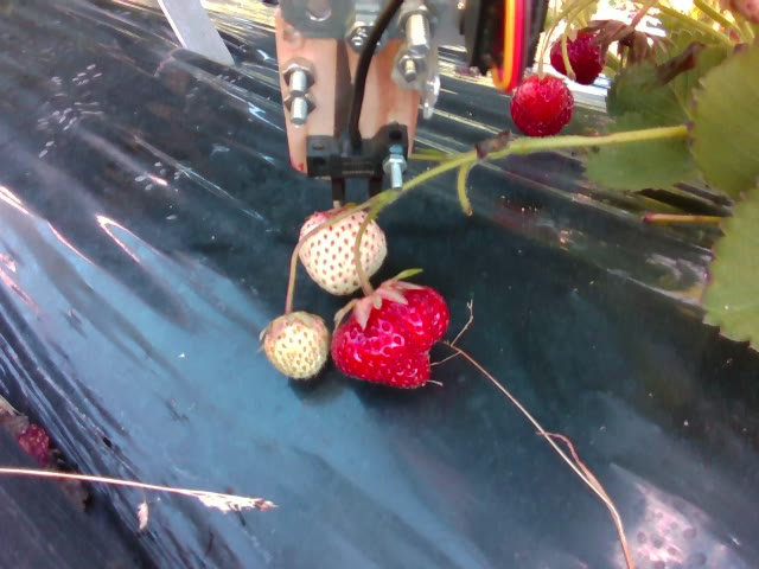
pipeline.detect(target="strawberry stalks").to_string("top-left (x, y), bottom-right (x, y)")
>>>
top-left (272, 246), bottom-right (312, 328)
top-left (530, 19), bottom-right (557, 102)
top-left (355, 219), bottom-right (388, 327)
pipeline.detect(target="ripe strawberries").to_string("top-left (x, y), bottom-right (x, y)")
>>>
top-left (554, 31), bottom-right (614, 81)
top-left (336, 293), bottom-right (441, 385)
top-left (507, 77), bottom-right (581, 134)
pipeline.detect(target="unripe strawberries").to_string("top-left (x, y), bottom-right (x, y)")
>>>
top-left (266, 316), bottom-right (323, 373)
top-left (296, 208), bottom-right (385, 291)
